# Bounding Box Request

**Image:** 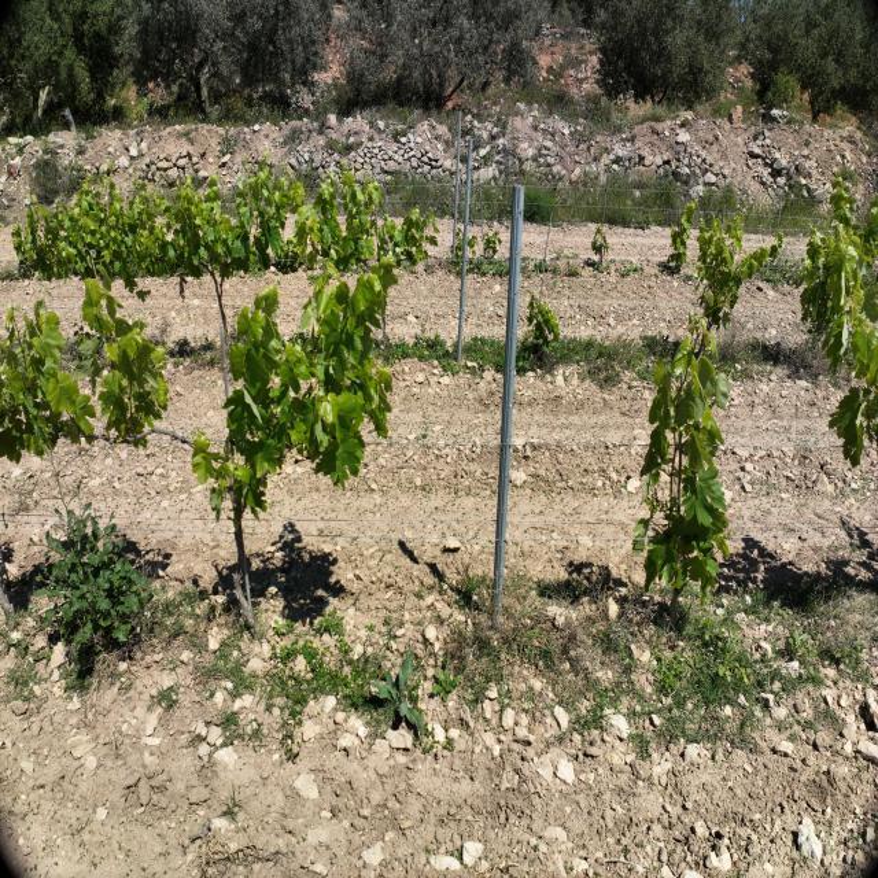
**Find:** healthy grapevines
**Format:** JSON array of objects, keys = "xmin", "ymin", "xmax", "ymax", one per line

[
  {"xmin": 0, "ymin": 246, "xmax": 420, "ymax": 648},
  {"xmin": 631, "ymin": 296, "xmax": 742, "ymax": 648}
]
